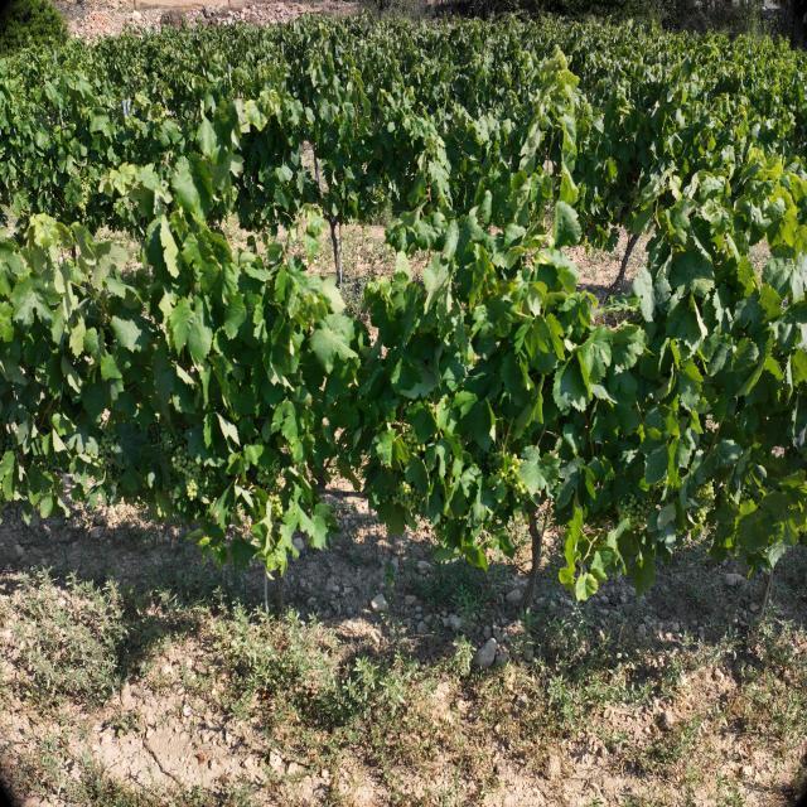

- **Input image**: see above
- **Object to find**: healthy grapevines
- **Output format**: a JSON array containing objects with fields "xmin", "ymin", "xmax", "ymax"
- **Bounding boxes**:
[
  {"xmin": 0, "ymin": 166, "xmax": 377, "ymax": 658},
  {"xmin": 371, "ymin": 163, "xmax": 656, "ymax": 656},
  {"xmin": 653, "ymin": 174, "xmax": 807, "ymax": 644}
]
